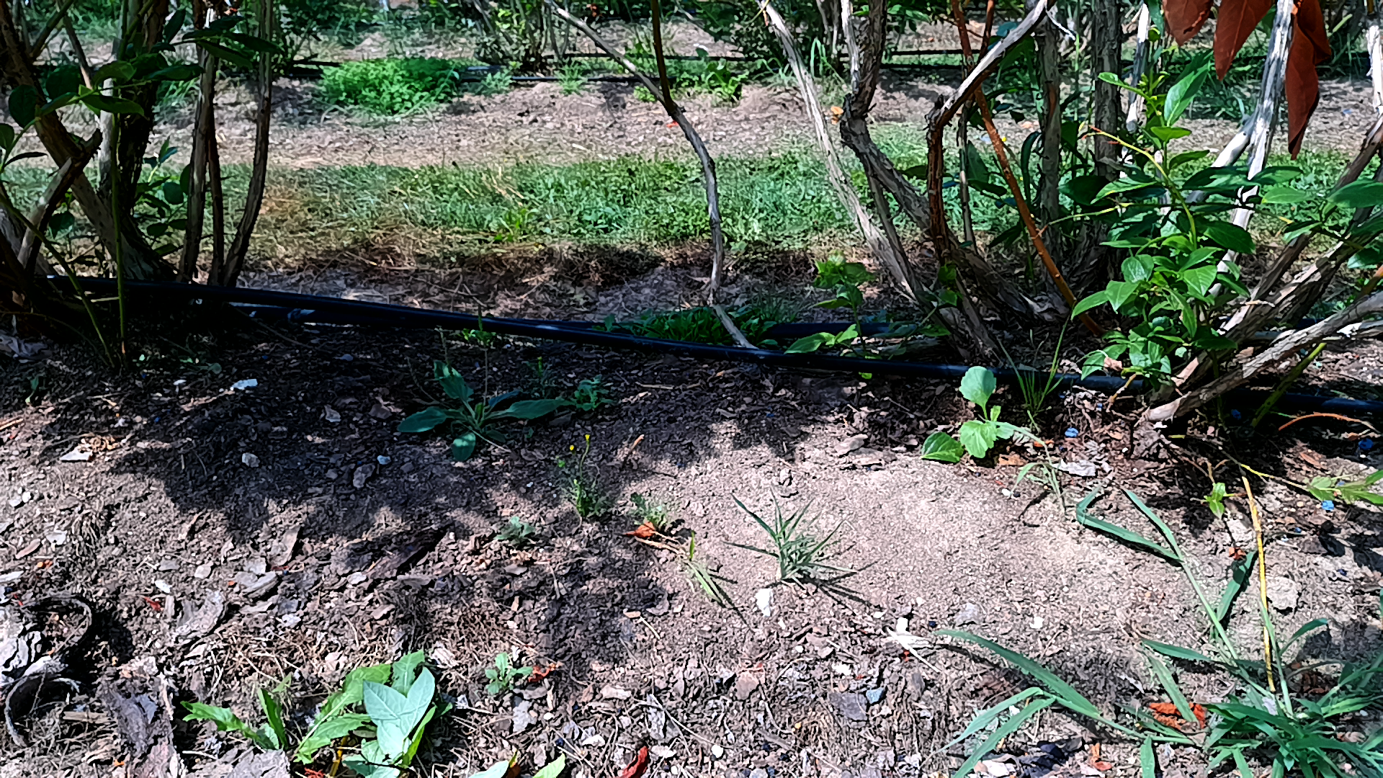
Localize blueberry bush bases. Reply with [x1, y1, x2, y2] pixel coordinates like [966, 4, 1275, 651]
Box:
[872, 171, 1383, 511]
[12, 156, 277, 392]
[472, 24, 567, 88]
